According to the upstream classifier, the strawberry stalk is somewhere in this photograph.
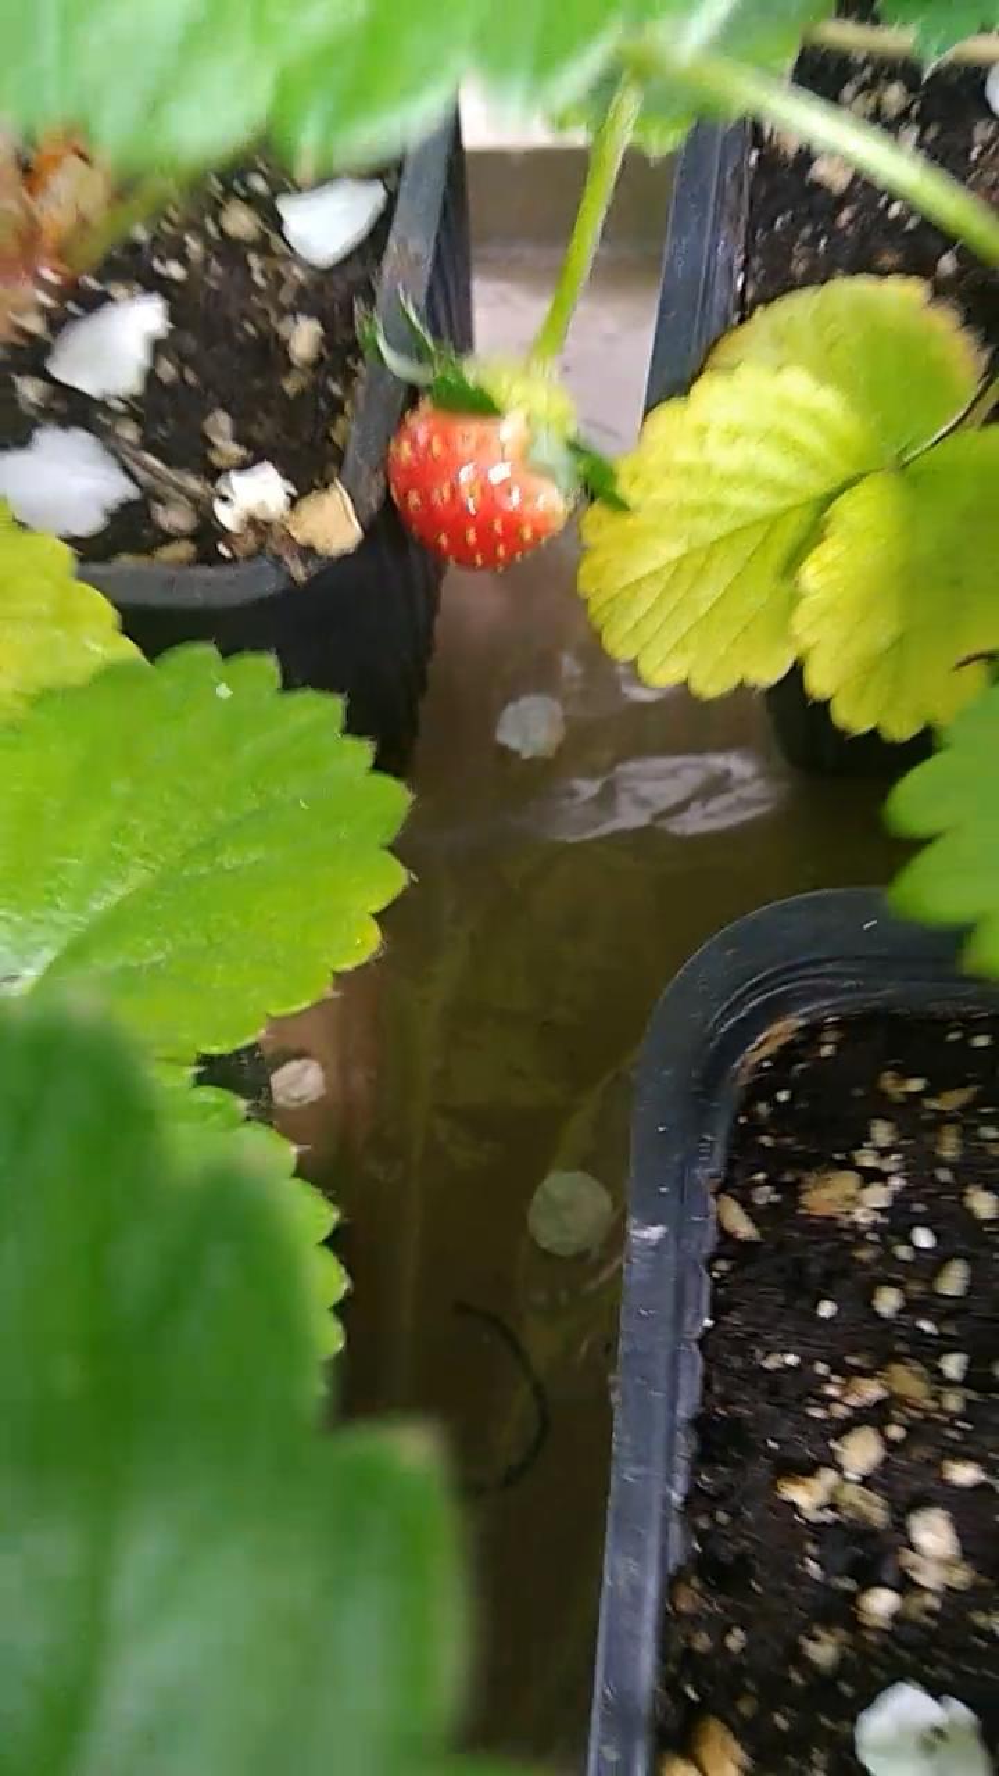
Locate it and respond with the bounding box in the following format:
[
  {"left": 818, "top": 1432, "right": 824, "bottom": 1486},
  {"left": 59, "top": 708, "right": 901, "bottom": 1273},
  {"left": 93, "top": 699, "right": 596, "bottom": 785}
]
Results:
[{"left": 474, "top": 107, "right": 674, "bottom": 445}]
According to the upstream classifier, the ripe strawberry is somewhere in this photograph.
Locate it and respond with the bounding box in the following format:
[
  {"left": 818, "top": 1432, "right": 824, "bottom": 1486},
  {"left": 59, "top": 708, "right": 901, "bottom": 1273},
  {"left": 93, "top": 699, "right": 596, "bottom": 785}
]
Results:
[{"left": 377, "top": 384, "right": 604, "bottom": 571}]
